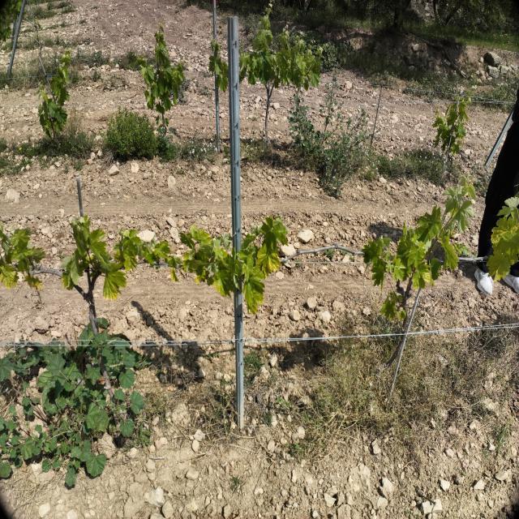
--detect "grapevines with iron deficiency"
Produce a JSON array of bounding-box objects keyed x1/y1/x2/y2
[
  {"x1": 0, "y1": 211, "x2": 264, "y2": 411},
  {"x1": 258, "y1": 173, "x2": 519, "y2": 388}
]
